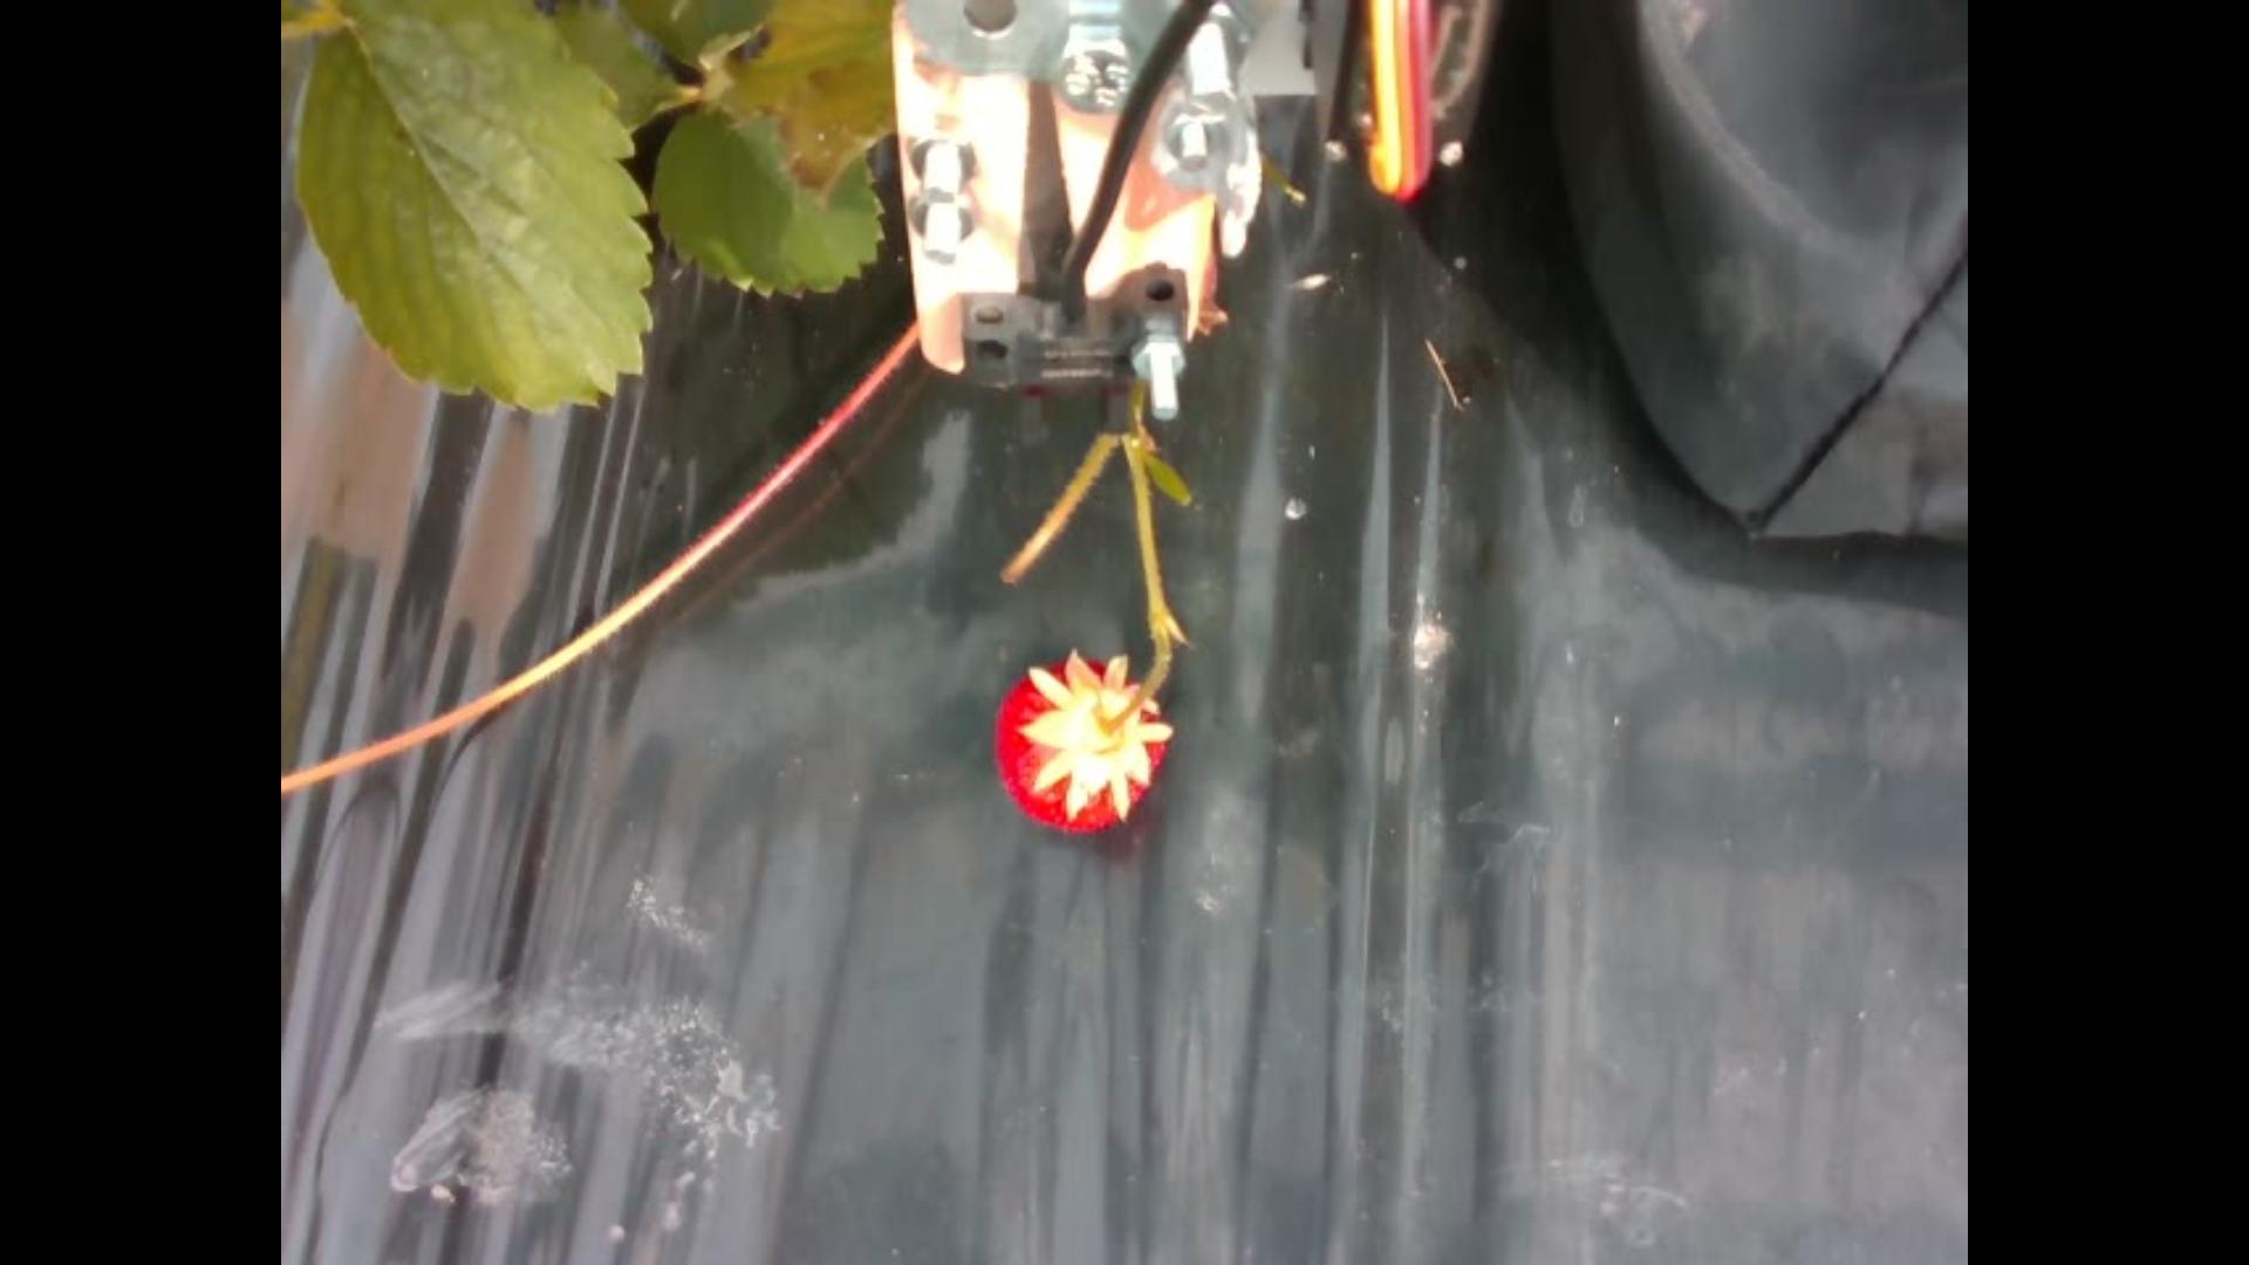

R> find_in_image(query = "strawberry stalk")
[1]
[1125,490,1187,748]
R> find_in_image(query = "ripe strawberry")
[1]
[967,652,1187,831]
